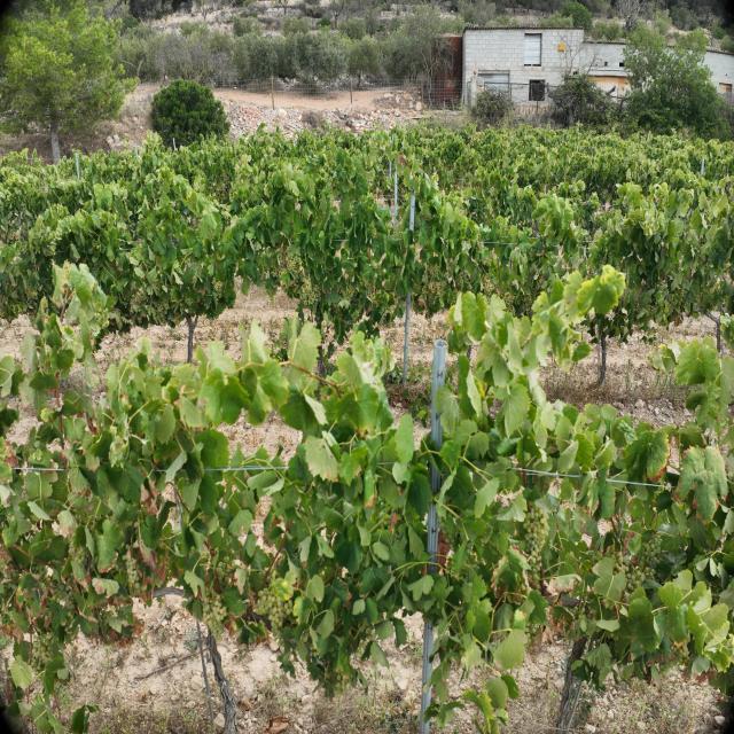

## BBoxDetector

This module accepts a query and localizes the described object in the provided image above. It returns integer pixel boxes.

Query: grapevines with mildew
[0,335,398,734]
[400,334,734,734]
